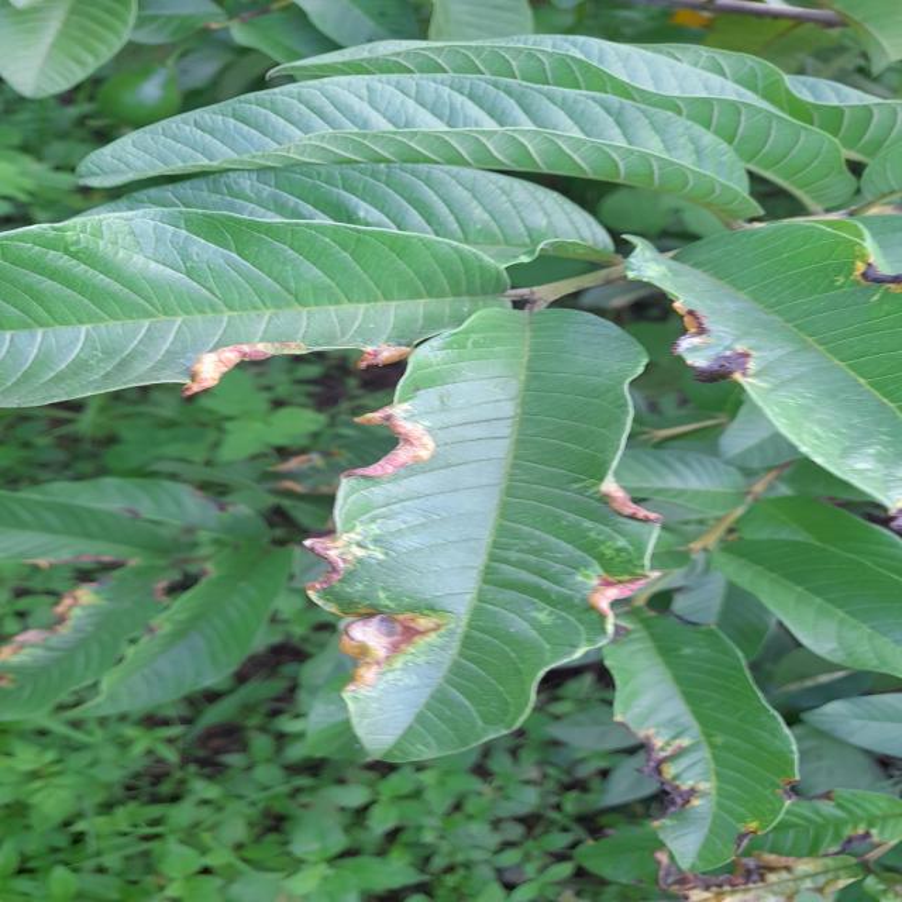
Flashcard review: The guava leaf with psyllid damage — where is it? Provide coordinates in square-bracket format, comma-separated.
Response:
[278, 282, 722, 786]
